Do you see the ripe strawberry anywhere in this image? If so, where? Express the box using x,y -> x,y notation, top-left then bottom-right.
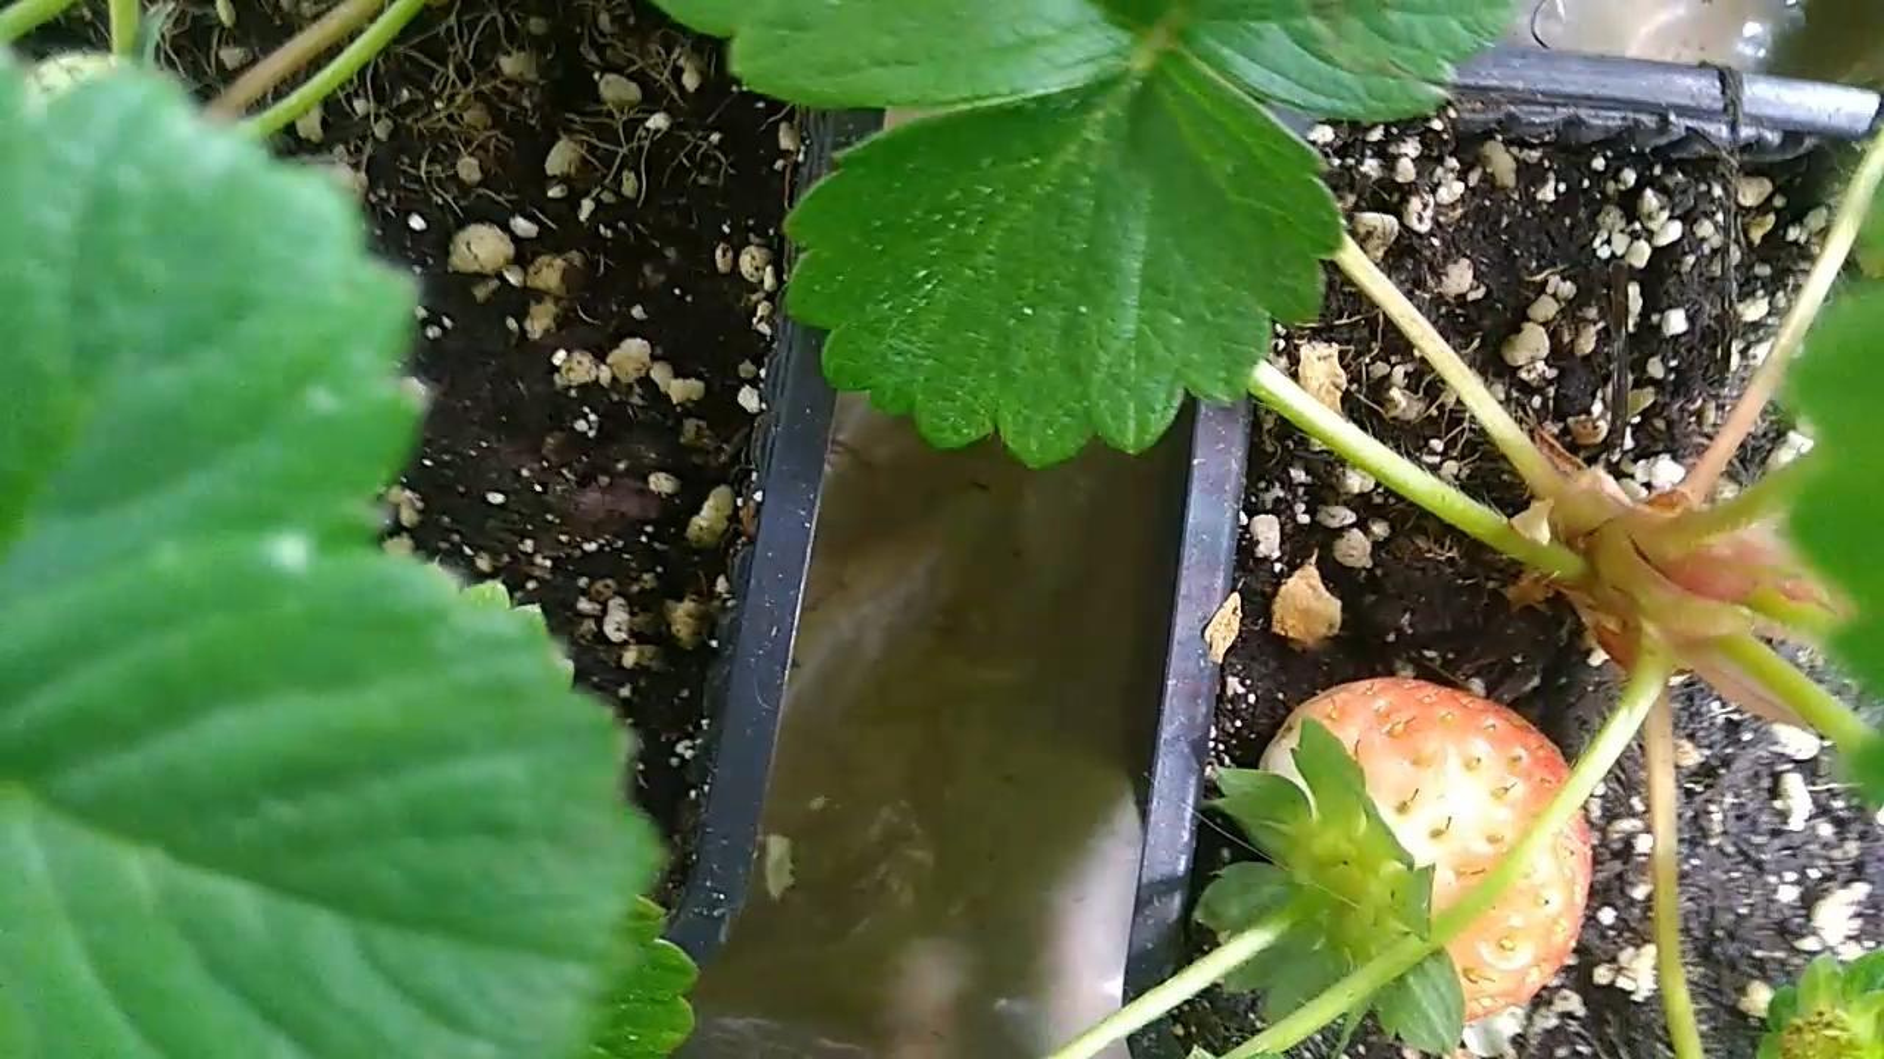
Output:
1251,676 -> 1598,1017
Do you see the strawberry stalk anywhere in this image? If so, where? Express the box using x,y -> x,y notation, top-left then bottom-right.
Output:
1059,855 -> 1377,1026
